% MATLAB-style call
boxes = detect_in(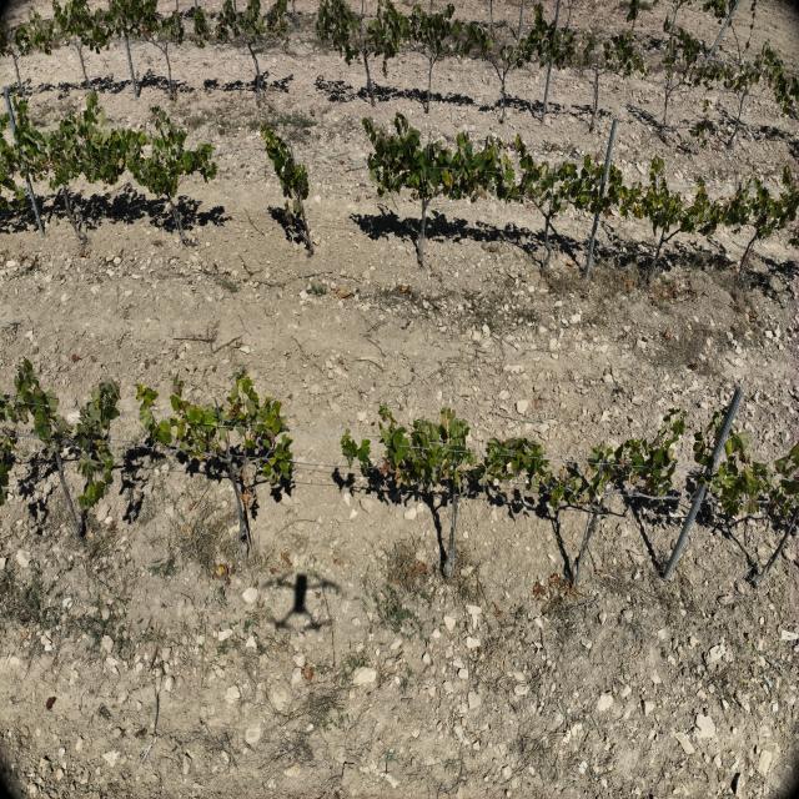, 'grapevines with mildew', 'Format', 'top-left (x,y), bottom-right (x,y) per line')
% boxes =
(688, 401), (799, 600)
(0, 353), (125, 553)
(514, 409), (692, 605)
(340, 397), (529, 592)
(135, 363), (297, 558)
